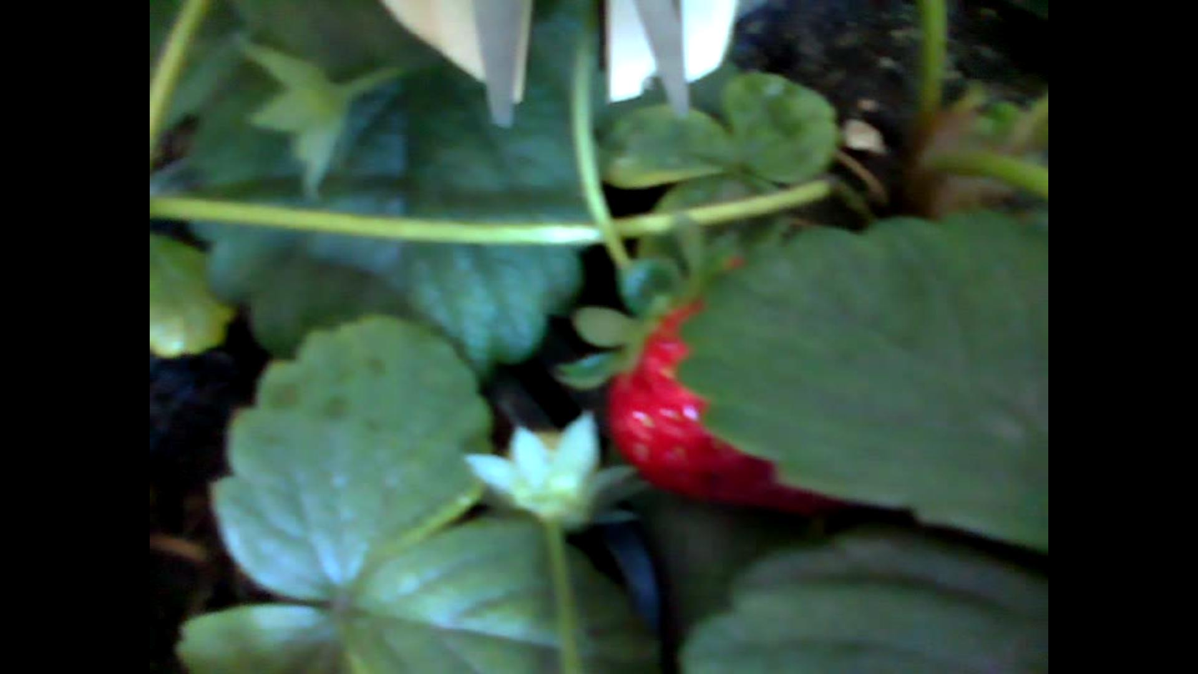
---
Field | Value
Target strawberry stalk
[549,75,696,368]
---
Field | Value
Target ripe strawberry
[587,273,839,514]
